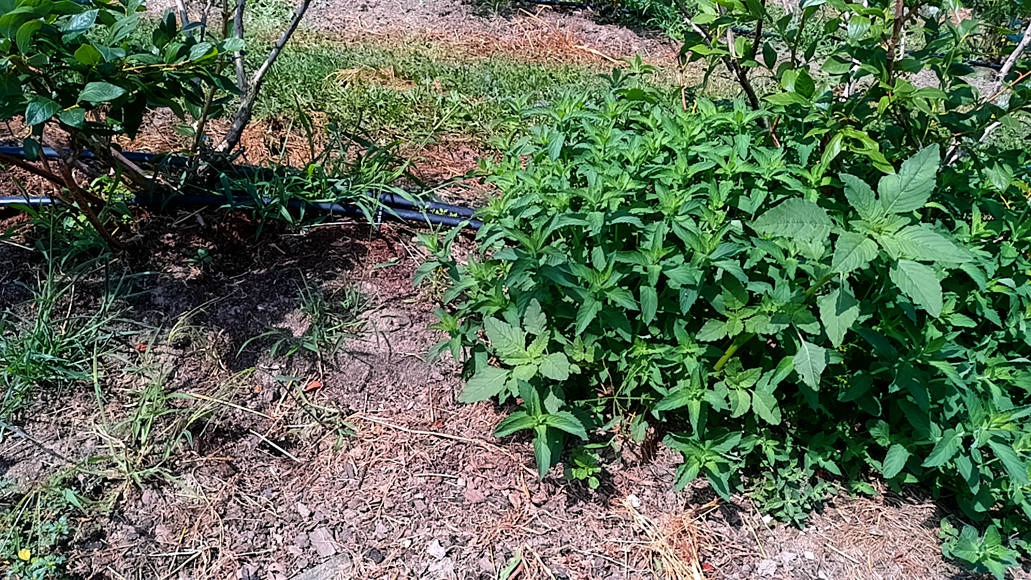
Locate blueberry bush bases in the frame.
[706,43,1016,225]
[49,53,300,286]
